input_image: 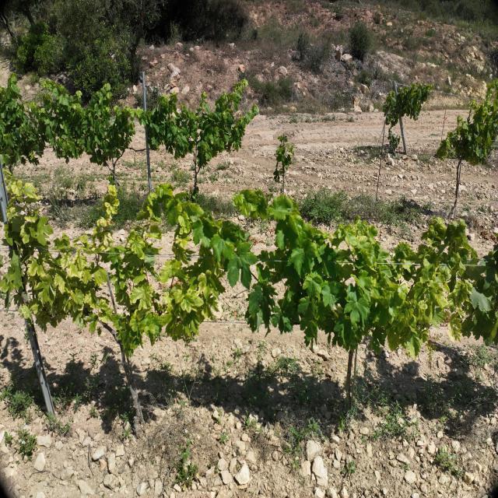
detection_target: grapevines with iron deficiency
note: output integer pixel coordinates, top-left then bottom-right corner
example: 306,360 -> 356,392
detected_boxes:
230,189 -> 498,432
0,175 -> 230,449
